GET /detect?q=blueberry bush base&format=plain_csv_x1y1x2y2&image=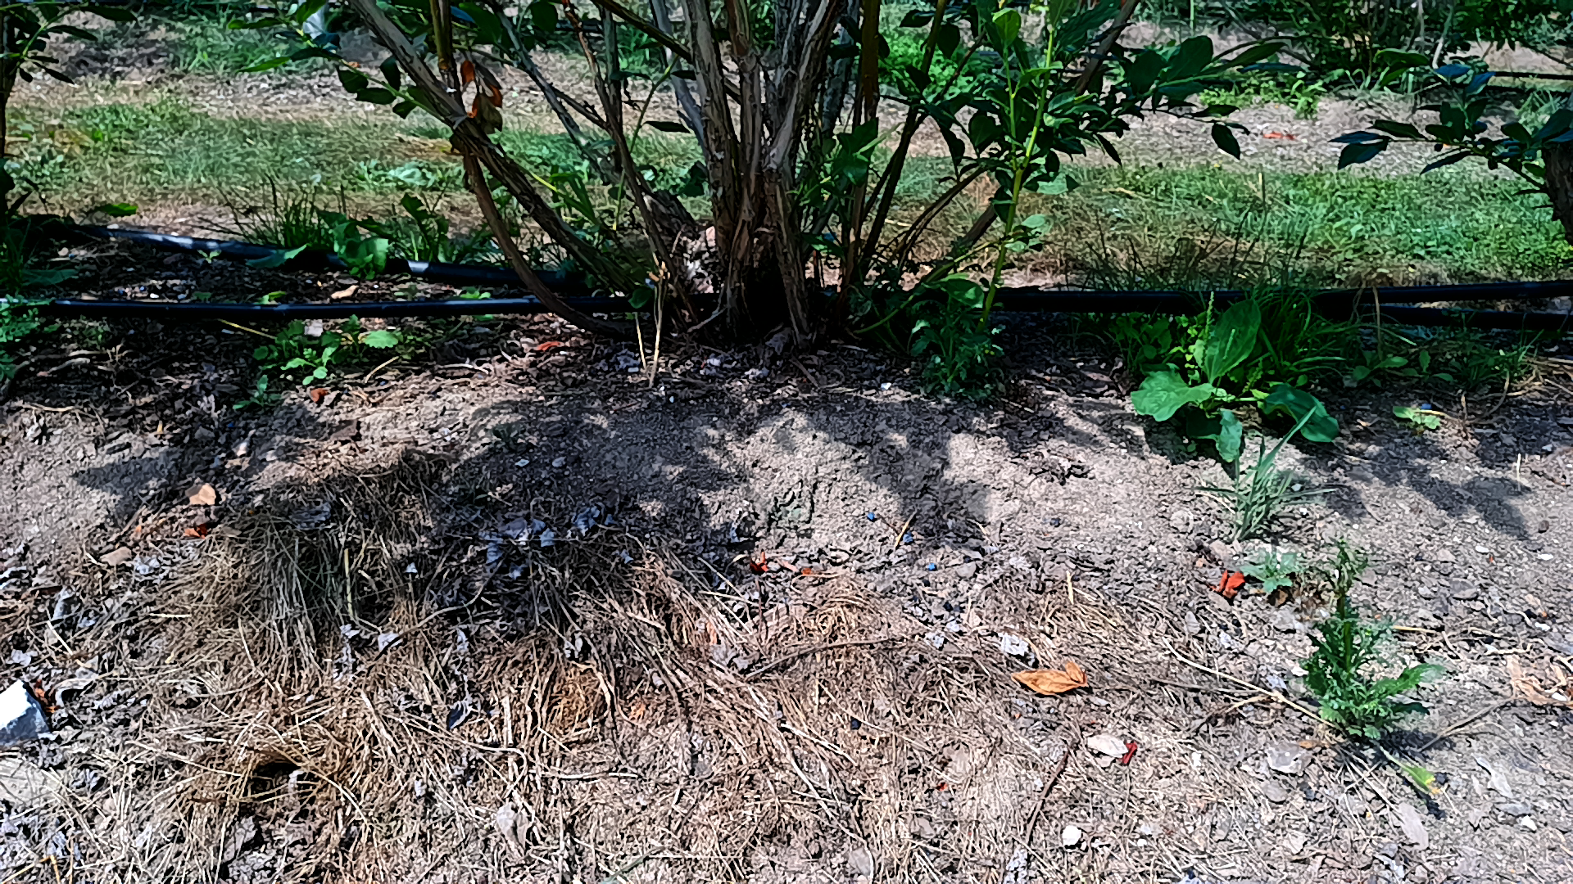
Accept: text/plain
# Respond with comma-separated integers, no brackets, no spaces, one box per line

485,99,986,409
